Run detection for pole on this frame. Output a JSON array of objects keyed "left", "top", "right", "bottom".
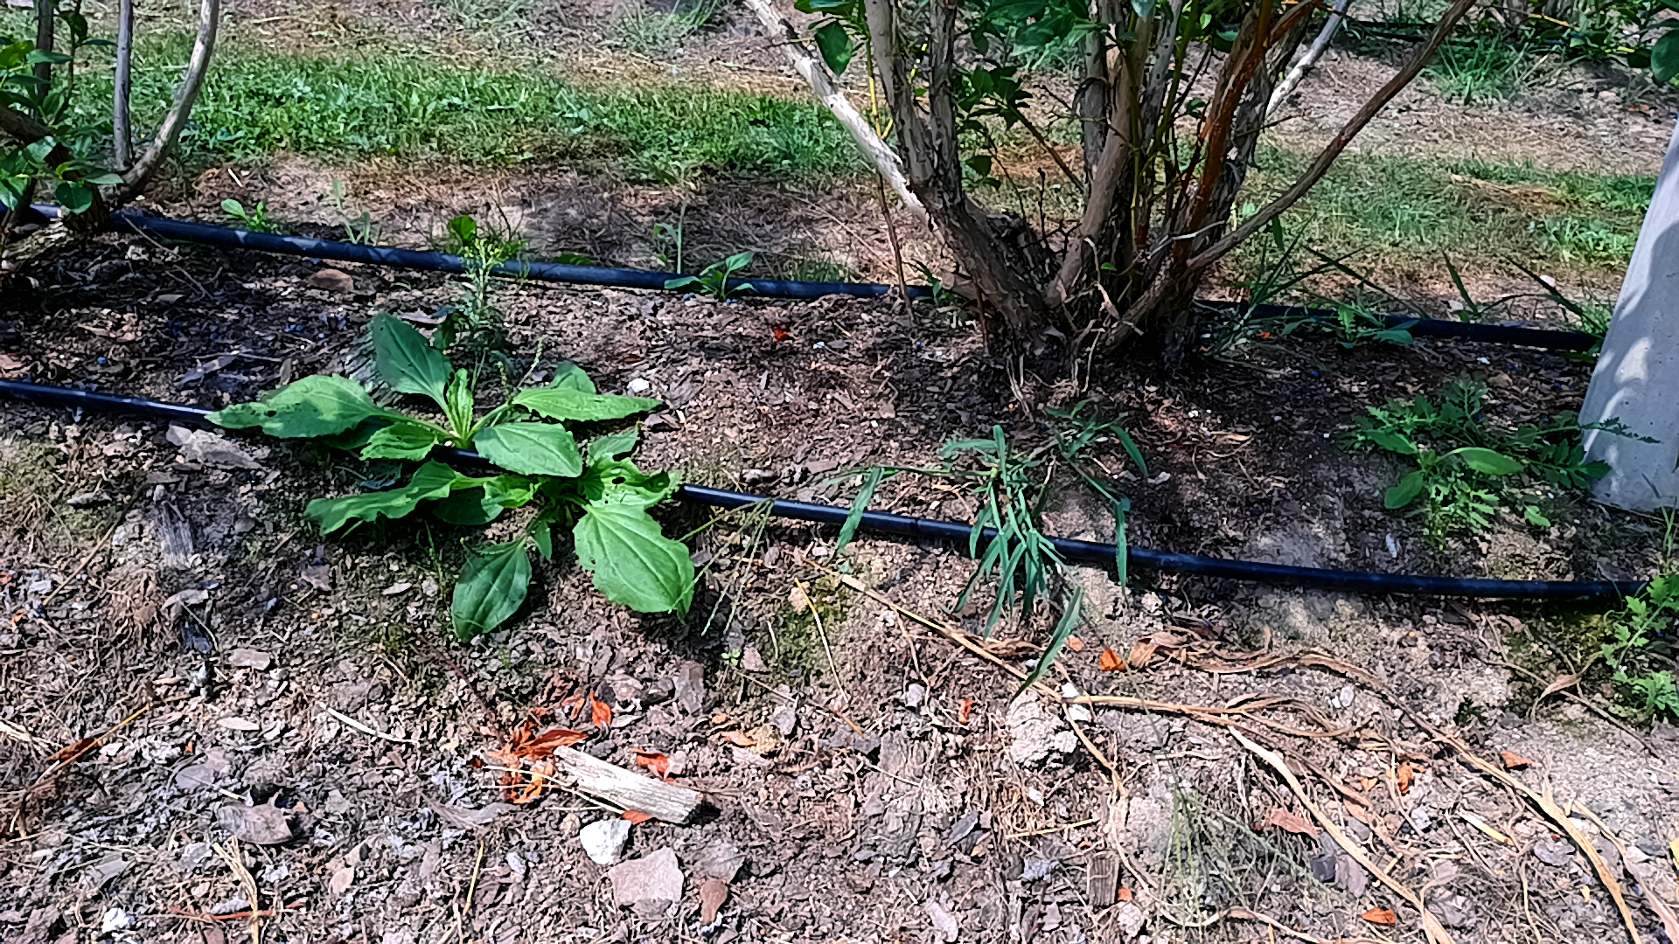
[{"left": 1571, "top": 116, "right": 1679, "bottom": 531}]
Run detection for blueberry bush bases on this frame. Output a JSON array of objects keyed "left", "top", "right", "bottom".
[
  {"left": 871, "top": 121, "right": 1321, "bottom": 435},
  {"left": 0, "top": 60, "right": 226, "bottom": 344}
]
